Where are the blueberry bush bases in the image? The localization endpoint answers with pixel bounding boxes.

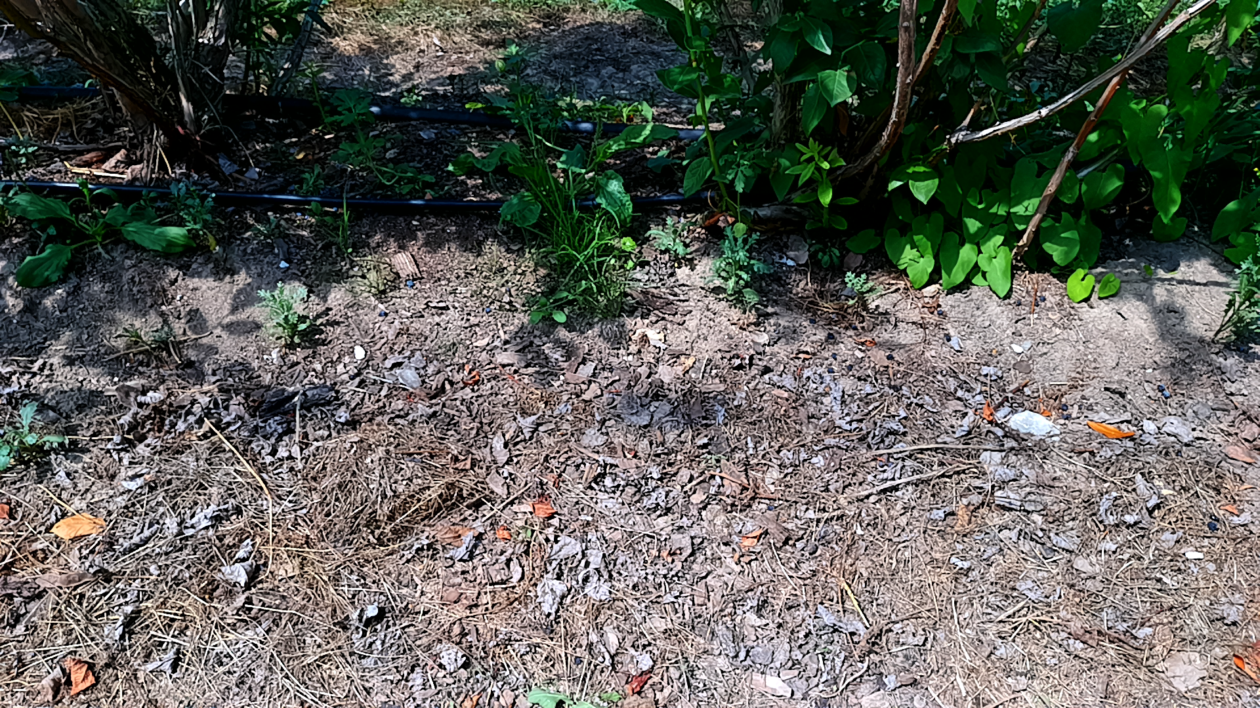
[30,19,299,220]
[723,62,1122,288]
